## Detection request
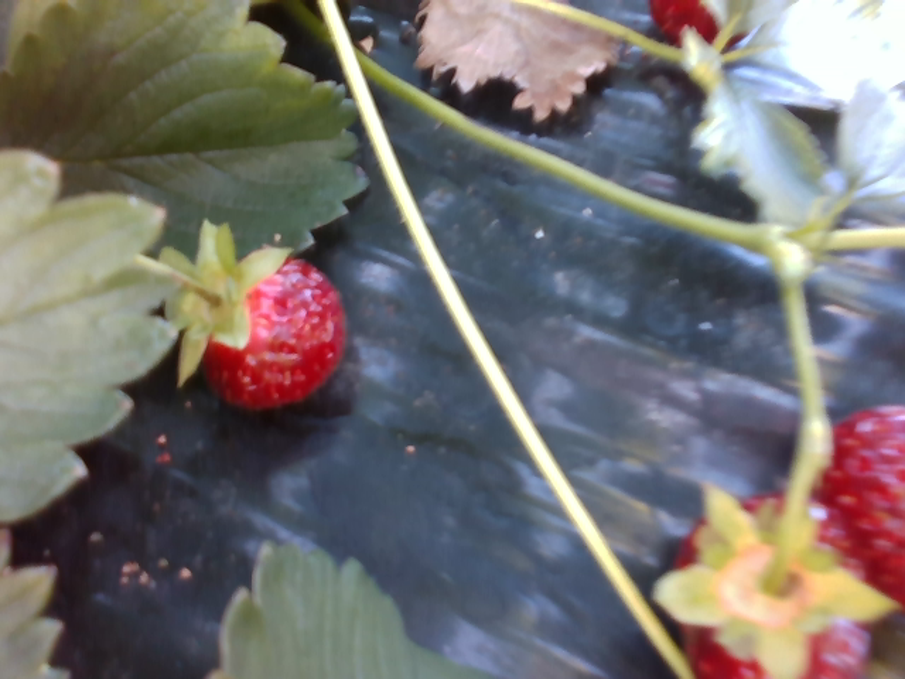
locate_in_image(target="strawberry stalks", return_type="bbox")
[744,415,844,600]
[97,245,248,322]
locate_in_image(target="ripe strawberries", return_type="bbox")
[659,486,869,679]
[819,400,905,594]
[203,253,358,411]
